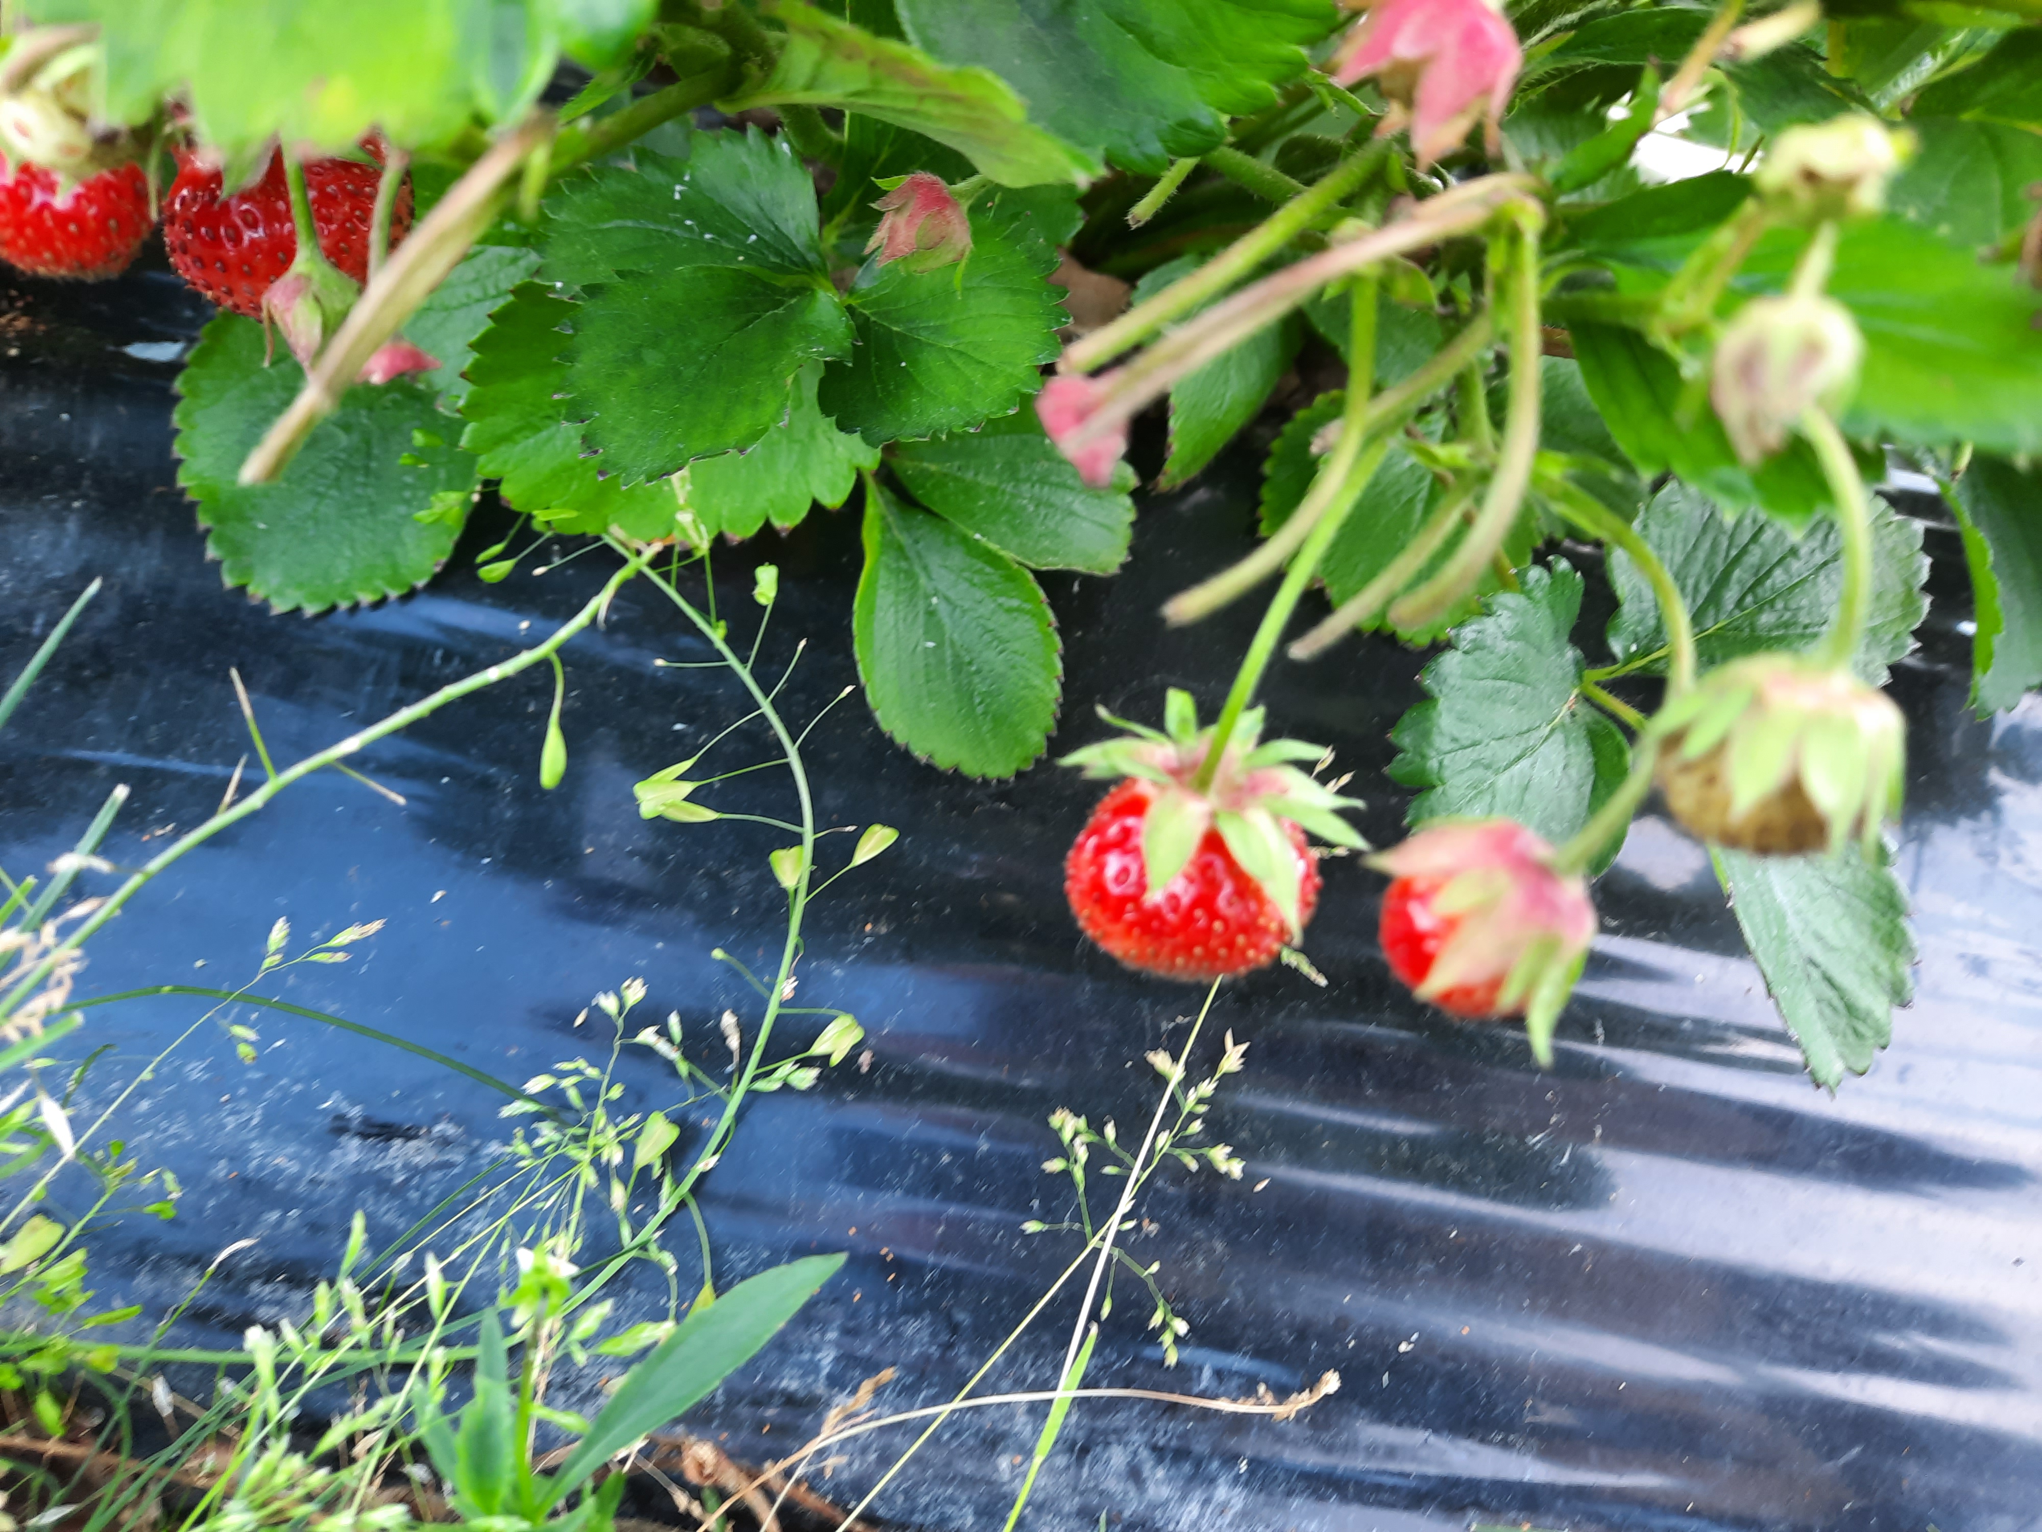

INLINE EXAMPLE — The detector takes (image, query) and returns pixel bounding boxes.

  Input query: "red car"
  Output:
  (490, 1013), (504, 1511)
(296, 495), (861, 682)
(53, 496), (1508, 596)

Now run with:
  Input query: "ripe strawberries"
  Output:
(1053, 742), (1313, 971)
(1382, 813), (1585, 1039)
(174, 119), (442, 303)
(0, 79), (146, 282)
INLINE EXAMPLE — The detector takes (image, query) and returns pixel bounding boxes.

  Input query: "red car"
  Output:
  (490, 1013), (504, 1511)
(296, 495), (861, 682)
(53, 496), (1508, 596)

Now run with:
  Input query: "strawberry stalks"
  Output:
(1484, 696), (1680, 898)
(1140, 519), (1333, 856)
(1770, 427), (1870, 723)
